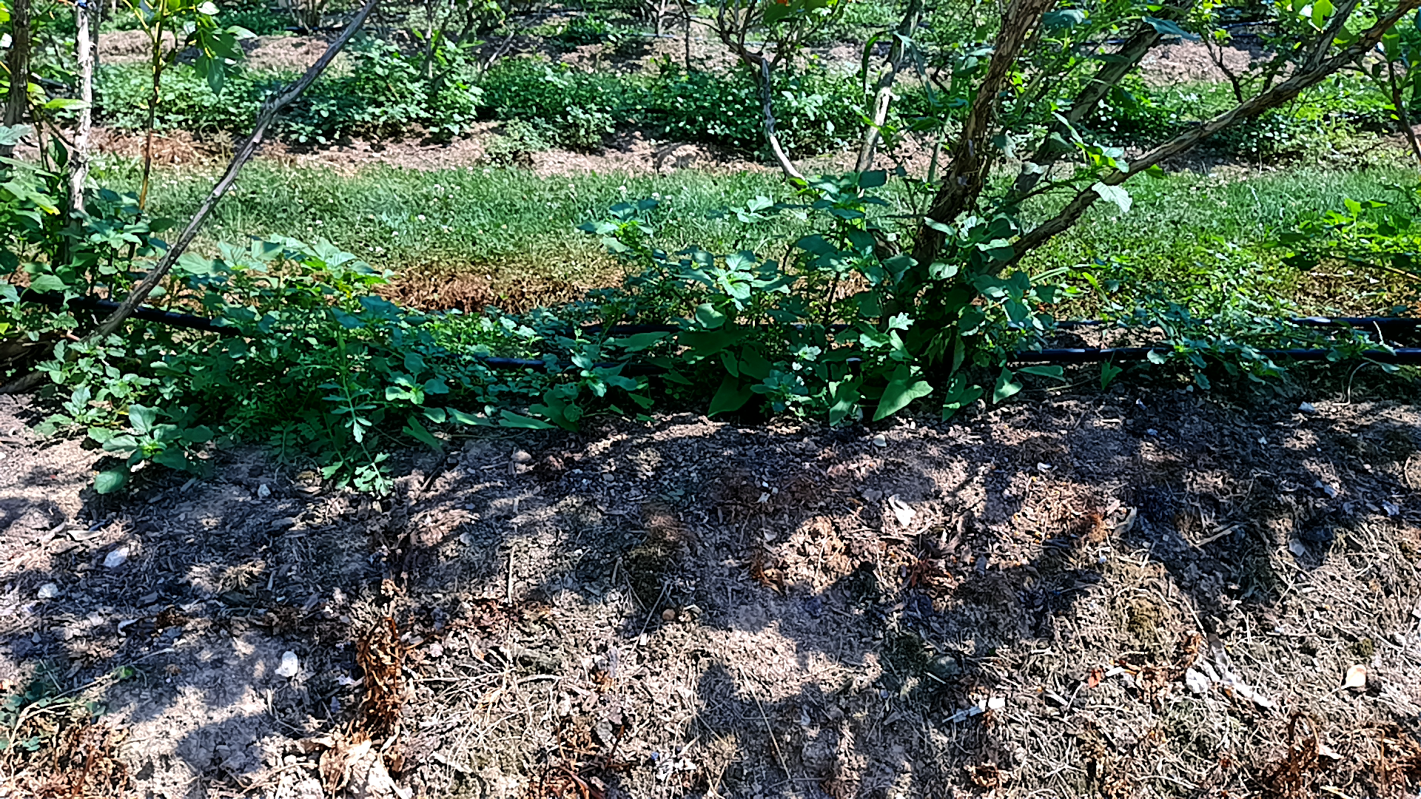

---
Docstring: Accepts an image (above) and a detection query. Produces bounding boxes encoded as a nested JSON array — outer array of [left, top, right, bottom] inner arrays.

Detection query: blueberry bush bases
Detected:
[[1, 163, 183, 439], [757, 165, 1082, 432]]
